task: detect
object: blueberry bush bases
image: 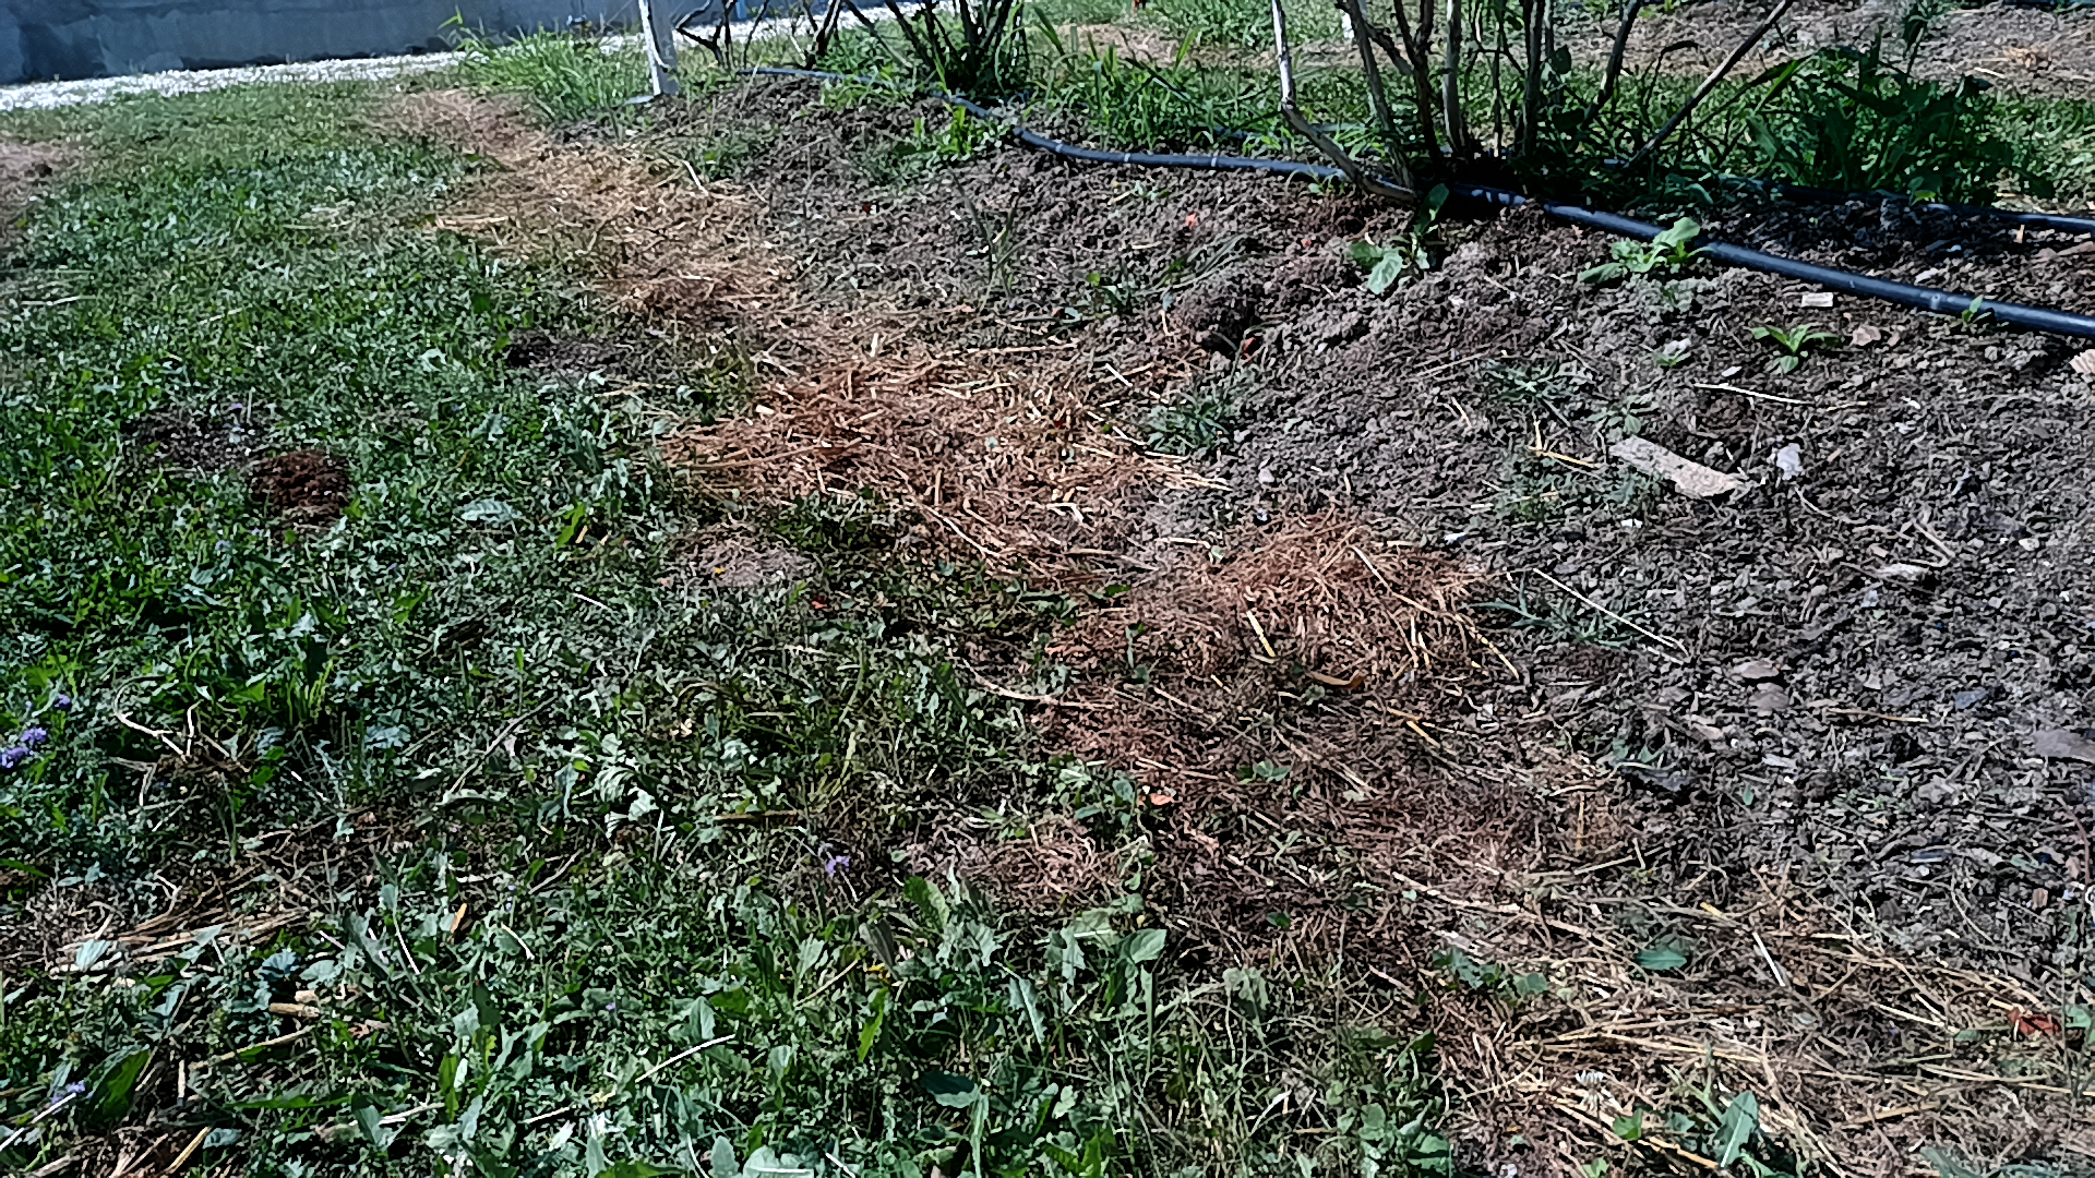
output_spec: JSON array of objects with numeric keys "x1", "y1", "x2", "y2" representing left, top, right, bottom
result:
[
  {"x1": 1316, "y1": 63, "x2": 1693, "y2": 266},
  {"x1": 877, "y1": 8, "x2": 1047, "y2": 134},
  {"x1": 691, "y1": 16, "x2": 845, "y2": 79}
]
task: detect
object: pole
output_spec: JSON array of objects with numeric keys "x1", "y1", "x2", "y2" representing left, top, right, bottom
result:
[{"x1": 639, "y1": 14, "x2": 685, "y2": 117}]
